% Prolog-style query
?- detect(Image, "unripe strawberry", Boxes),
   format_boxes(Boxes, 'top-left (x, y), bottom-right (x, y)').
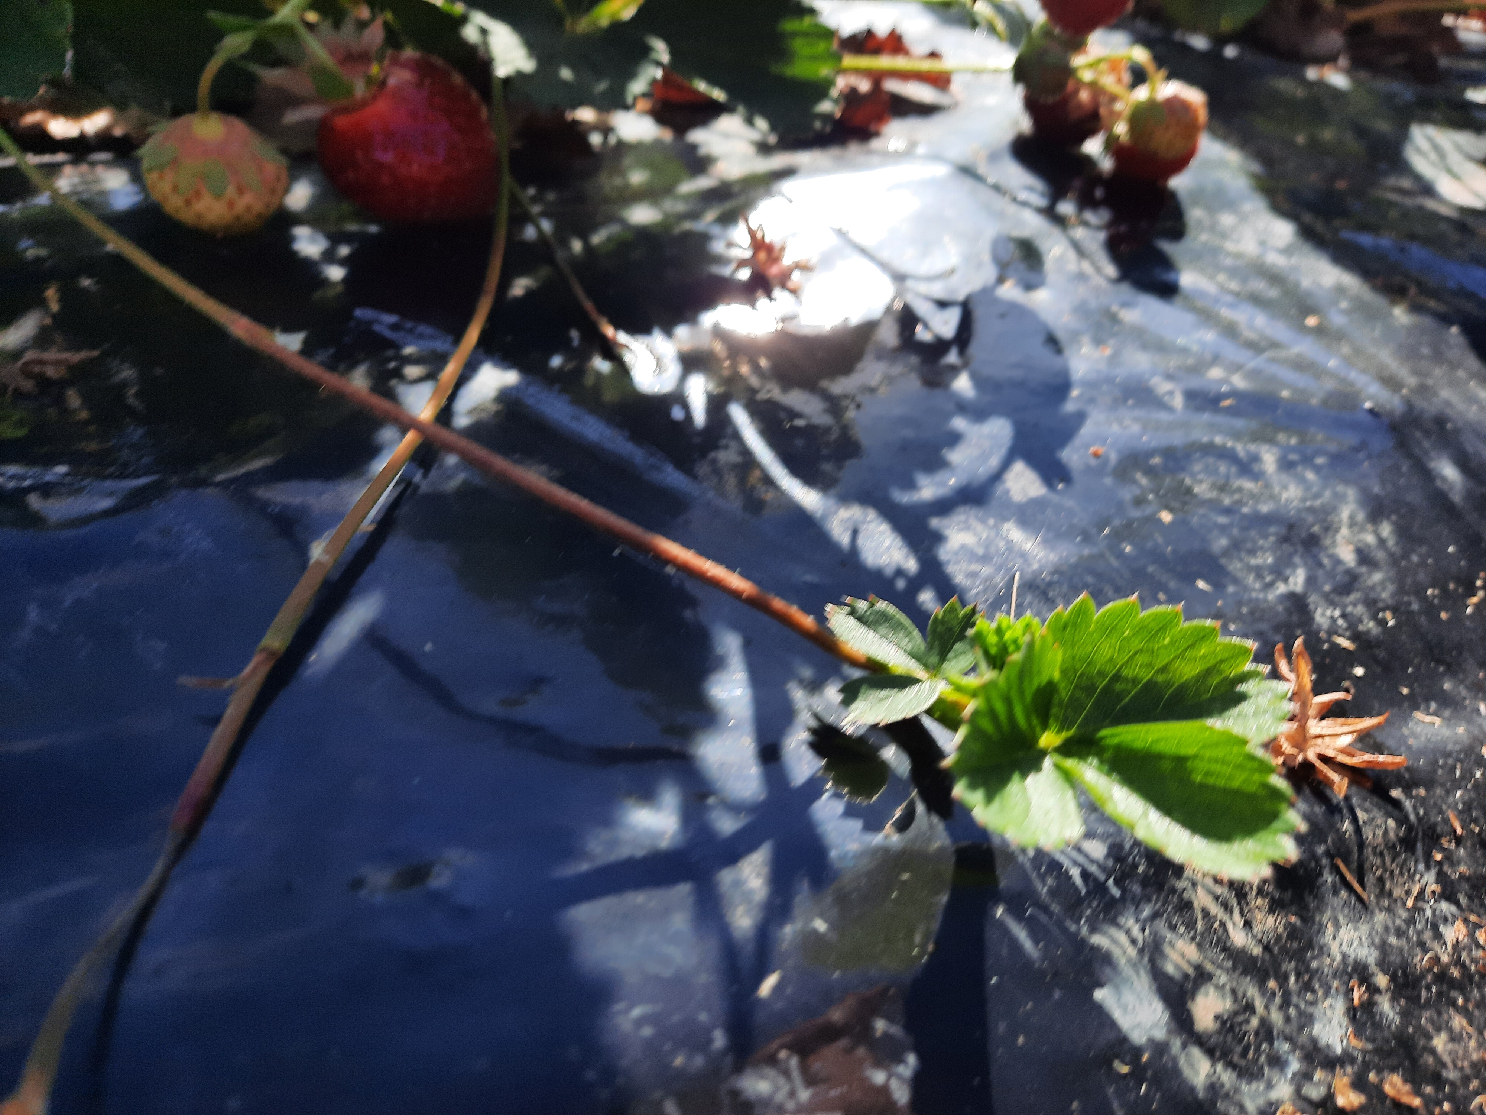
top-left (145, 129), bottom-right (283, 229)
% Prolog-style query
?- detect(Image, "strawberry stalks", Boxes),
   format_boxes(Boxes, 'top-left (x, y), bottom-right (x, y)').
top-left (284, 0), bottom-right (382, 100)
top-left (190, 27), bottom-right (264, 126)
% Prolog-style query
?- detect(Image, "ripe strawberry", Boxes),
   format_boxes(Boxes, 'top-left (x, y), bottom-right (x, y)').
top-left (321, 70), bottom-right (501, 207)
